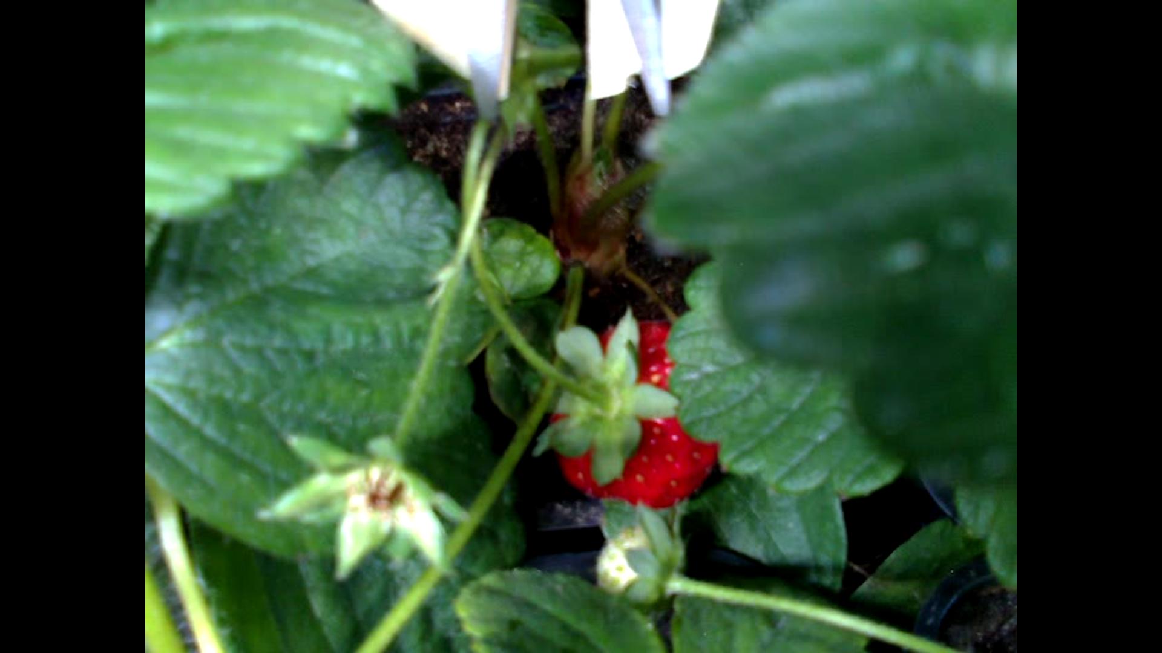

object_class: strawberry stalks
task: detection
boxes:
[345,371,411,498]
[482,281,614,422]
[660,557,764,622]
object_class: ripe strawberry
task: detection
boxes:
[553,323,738,517]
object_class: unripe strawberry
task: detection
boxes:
[591,532,689,604]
